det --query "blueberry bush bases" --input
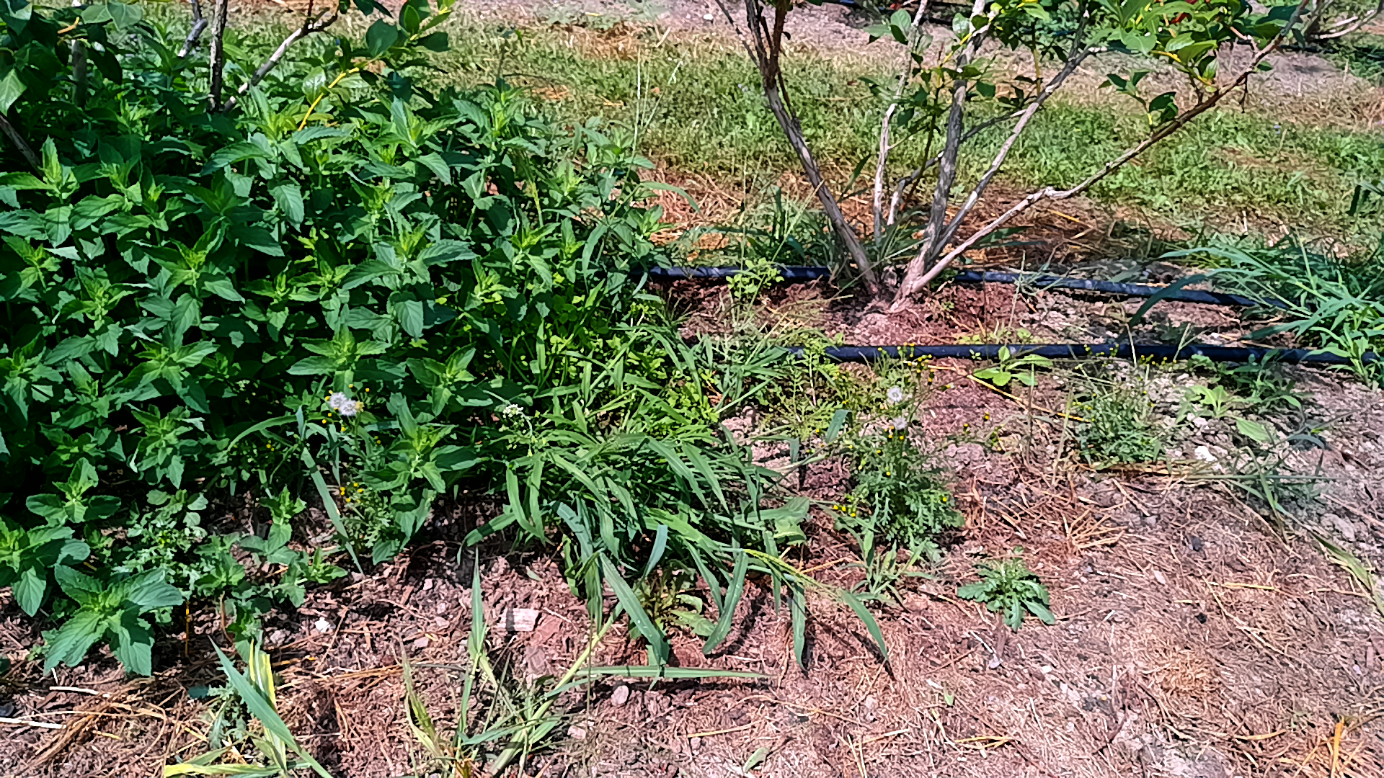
[13,22,290,188]
[767,135,1047,351]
